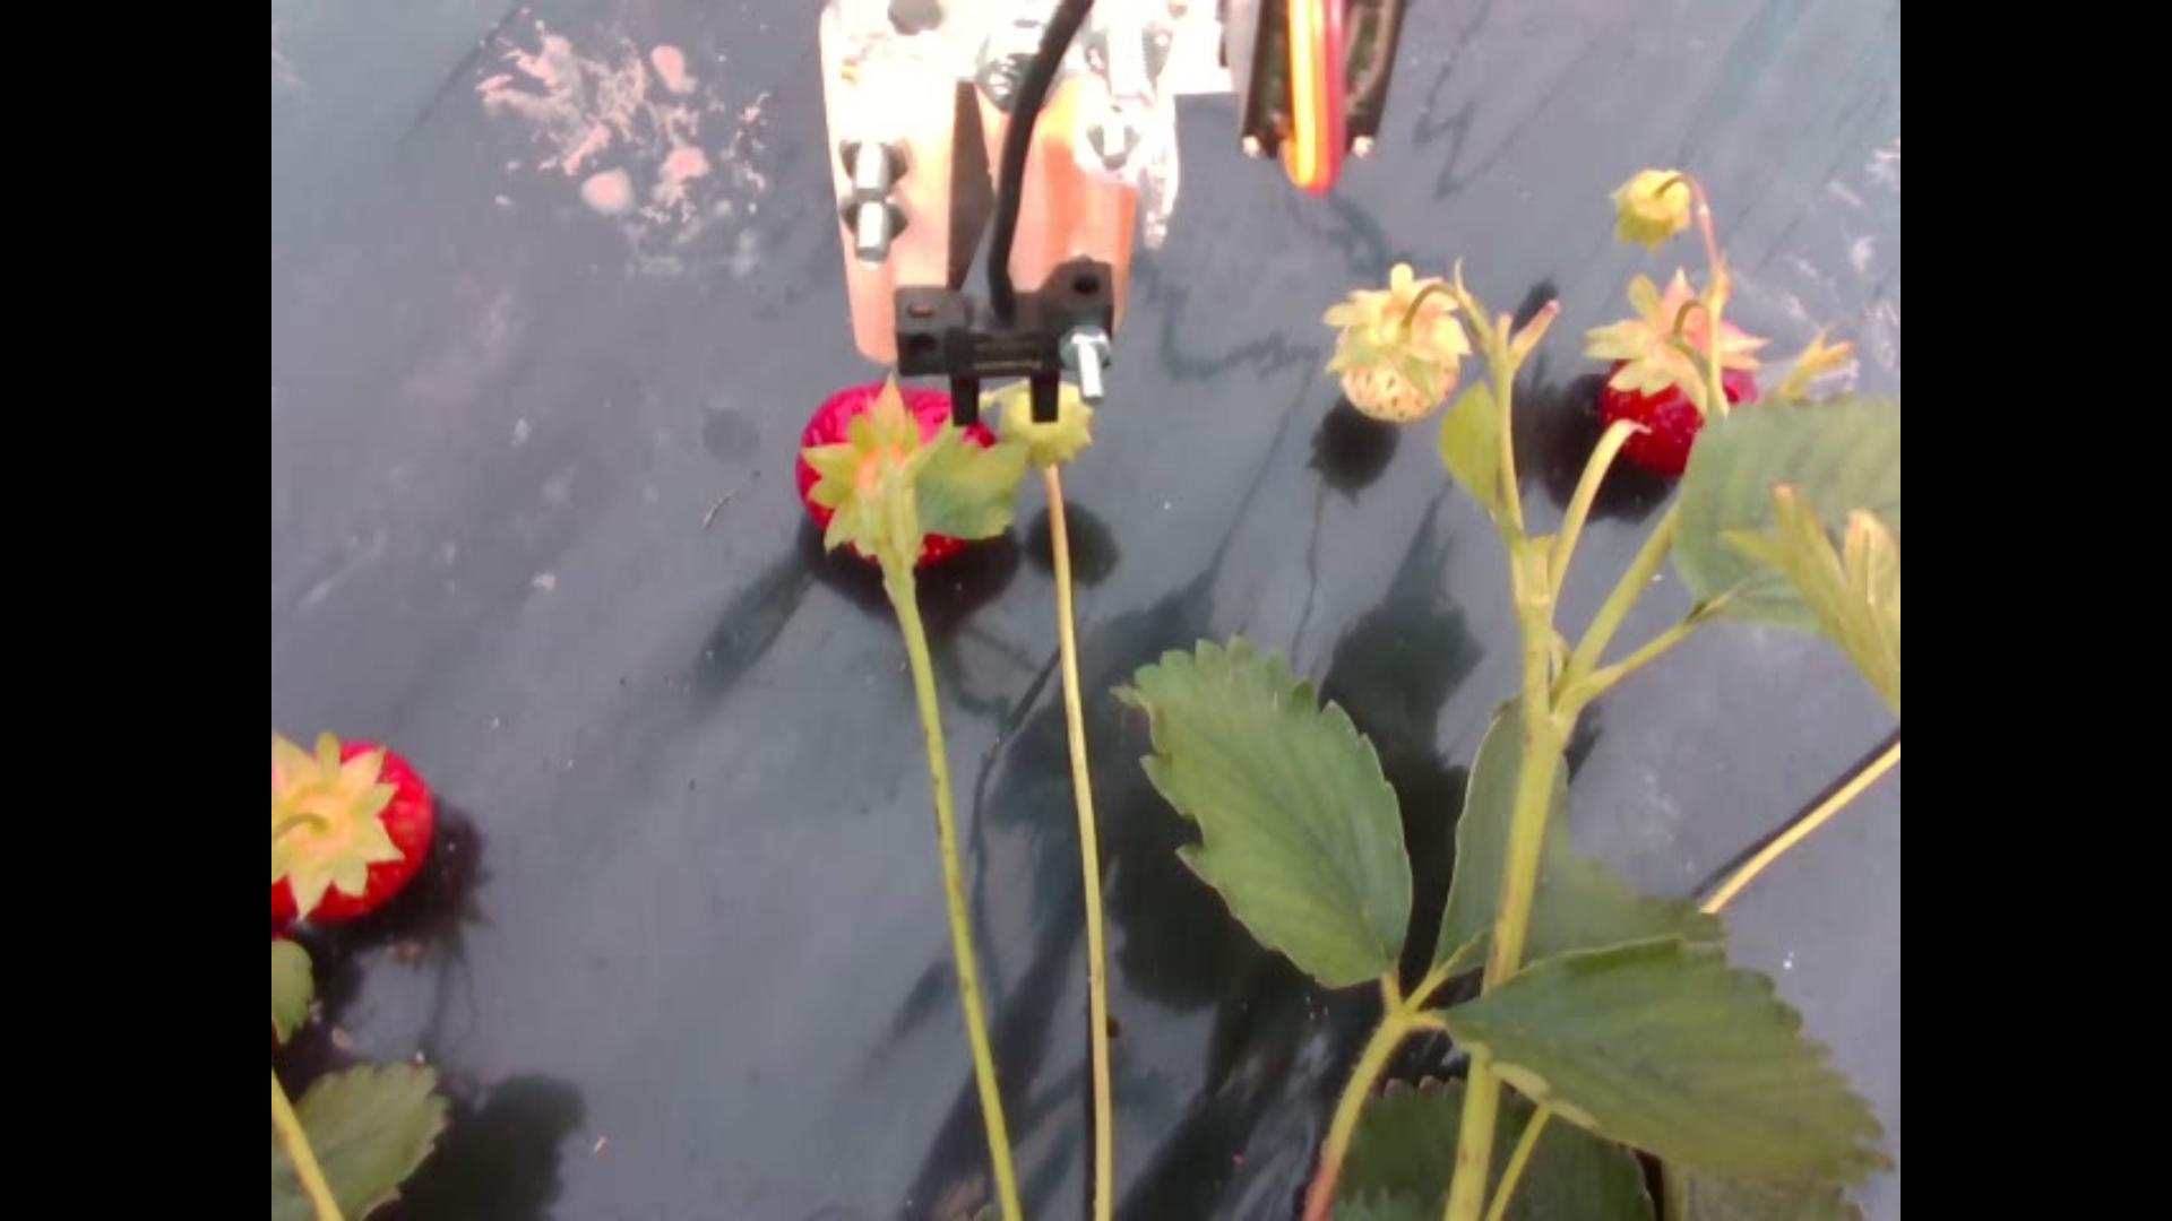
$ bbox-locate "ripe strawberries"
[787,361,996,573]
[272,739,462,948]
[1581,313,1777,474]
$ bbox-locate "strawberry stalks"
[1619,165,1725,245]
[1656,333,1760,445]
[848,469,953,661]
[263,791,358,849]
[1390,260,1489,329]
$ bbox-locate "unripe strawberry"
[1333,274,1467,429]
